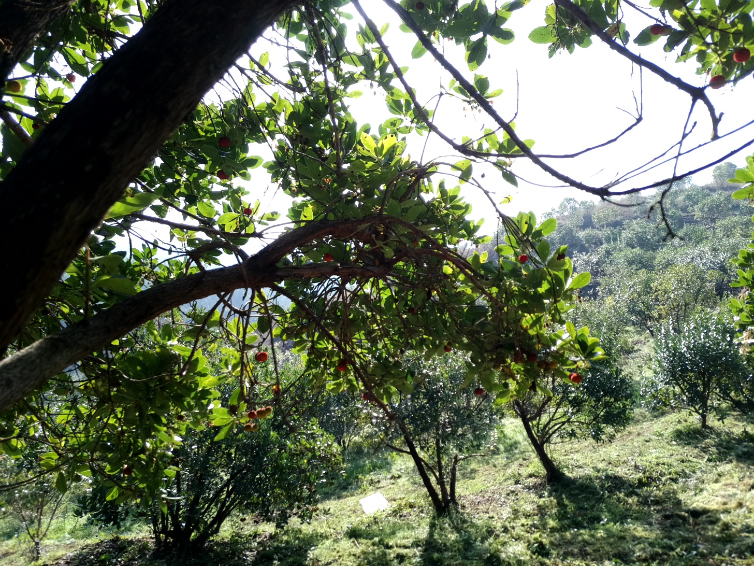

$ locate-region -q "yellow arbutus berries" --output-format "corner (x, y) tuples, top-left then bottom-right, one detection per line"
(549, 359), (558, 368)
(265, 405), (273, 414)
(256, 407), (268, 419)
(8, 80), (22, 93)
(251, 423), (259, 432)
(244, 423), (253, 432)
(412, 240), (419, 247)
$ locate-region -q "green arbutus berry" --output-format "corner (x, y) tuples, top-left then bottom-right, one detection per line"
(662, 24), (673, 37)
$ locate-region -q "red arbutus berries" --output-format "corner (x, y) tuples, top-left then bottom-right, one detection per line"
(733, 49), (751, 63)
(217, 168), (229, 180)
(571, 373), (582, 383)
(337, 363), (347, 371)
(67, 74), (76, 82)
(650, 24), (662, 35)
(243, 207), (252, 215)
(519, 254), (528, 263)
(248, 410), (257, 418)
(528, 352), (537, 362)
(709, 75), (726, 89)
(362, 393), (369, 401)
(219, 136), (231, 148)
(444, 345), (451, 352)
(475, 388), (483, 395)
(408, 307), (414, 314)
(255, 351), (268, 361)
(323, 253), (334, 262)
